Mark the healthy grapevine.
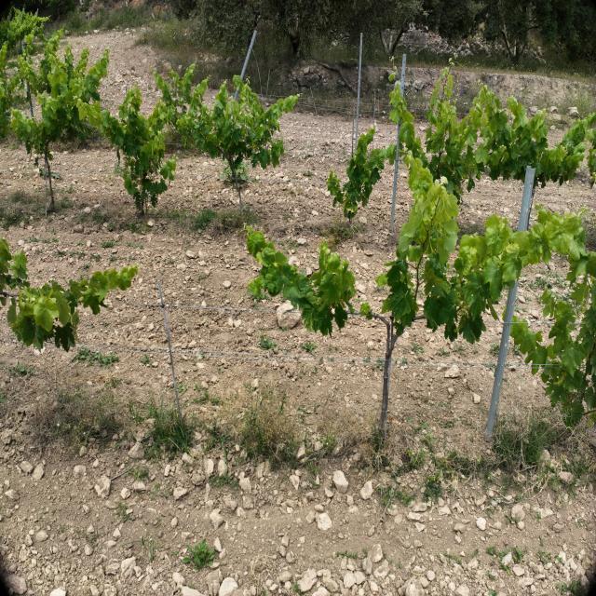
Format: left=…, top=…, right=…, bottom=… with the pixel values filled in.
left=242, top=184, right=574, bottom=461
